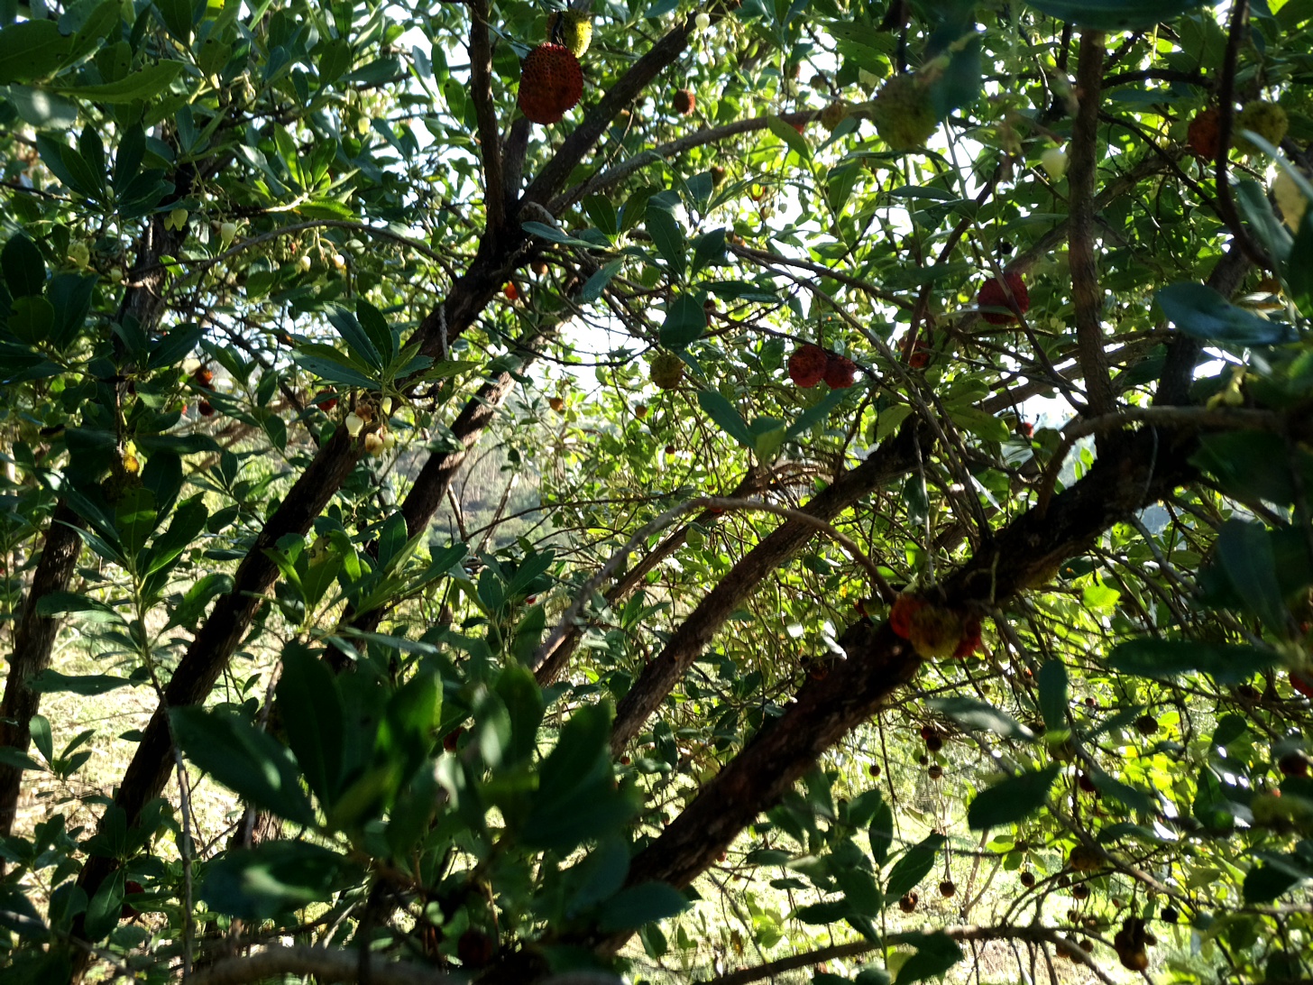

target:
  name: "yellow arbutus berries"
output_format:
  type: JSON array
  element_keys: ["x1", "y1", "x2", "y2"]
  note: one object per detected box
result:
[
  {"x1": 550, "y1": 397, "x2": 563, "y2": 412},
  {"x1": 1019, "y1": 870, "x2": 1036, "y2": 887},
  {"x1": 633, "y1": 404, "x2": 648, "y2": 416},
  {"x1": 908, "y1": 607, "x2": 963, "y2": 659},
  {"x1": 1068, "y1": 845, "x2": 1093, "y2": 868},
  {"x1": 1079, "y1": 939, "x2": 1094, "y2": 953},
  {"x1": 1055, "y1": 942, "x2": 1071, "y2": 959},
  {"x1": 928, "y1": 765, "x2": 943, "y2": 779},
  {"x1": 1119, "y1": 949, "x2": 1148, "y2": 970}
]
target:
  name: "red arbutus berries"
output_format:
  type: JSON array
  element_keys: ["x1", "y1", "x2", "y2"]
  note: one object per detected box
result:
[
  {"x1": 939, "y1": 881, "x2": 956, "y2": 897},
  {"x1": 822, "y1": 351, "x2": 860, "y2": 388},
  {"x1": 918, "y1": 724, "x2": 936, "y2": 739},
  {"x1": 955, "y1": 612, "x2": 981, "y2": 658},
  {"x1": 900, "y1": 896, "x2": 917, "y2": 913},
  {"x1": 674, "y1": 87, "x2": 698, "y2": 114},
  {"x1": 518, "y1": 40, "x2": 585, "y2": 120},
  {"x1": 890, "y1": 587, "x2": 932, "y2": 637},
  {"x1": 1185, "y1": 108, "x2": 1229, "y2": 158},
  {"x1": 665, "y1": 445, "x2": 675, "y2": 455},
  {"x1": 1084, "y1": 696, "x2": 1098, "y2": 707},
  {"x1": 195, "y1": 367, "x2": 216, "y2": 382},
  {"x1": 975, "y1": 269, "x2": 1030, "y2": 320},
  {"x1": 506, "y1": 283, "x2": 520, "y2": 299},
  {"x1": 786, "y1": 344, "x2": 826, "y2": 388},
  {"x1": 197, "y1": 401, "x2": 216, "y2": 416},
  {"x1": 1286, "y1": 666, "x2": 1313, "y2": 699},
  {"x1": 314, "y1": 389, "x2": 336, "y2": 410}
]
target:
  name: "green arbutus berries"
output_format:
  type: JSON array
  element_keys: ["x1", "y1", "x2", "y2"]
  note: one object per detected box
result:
[
  {"x1": 1135, "y1": 713, "x2": 1158, "y2": 734},
  {"x1": 1015, "y1": 839, "x2": 1030, "y2": 852},
  {"x1": 871, "y1": 72, "x2": 940, "y2": 153},
  {"x1": 648, "y1": 354, "x2": 686, "y2": 389},
  {"x1": 540, "y1": 6, "x2": 591, "y2": 60},
  {"x1": 1229, "y1": 97, "x2": 1289, "y2": 155},
  {"x1": 821, "y1": 103, "x2": 849, "y2": 131}
]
